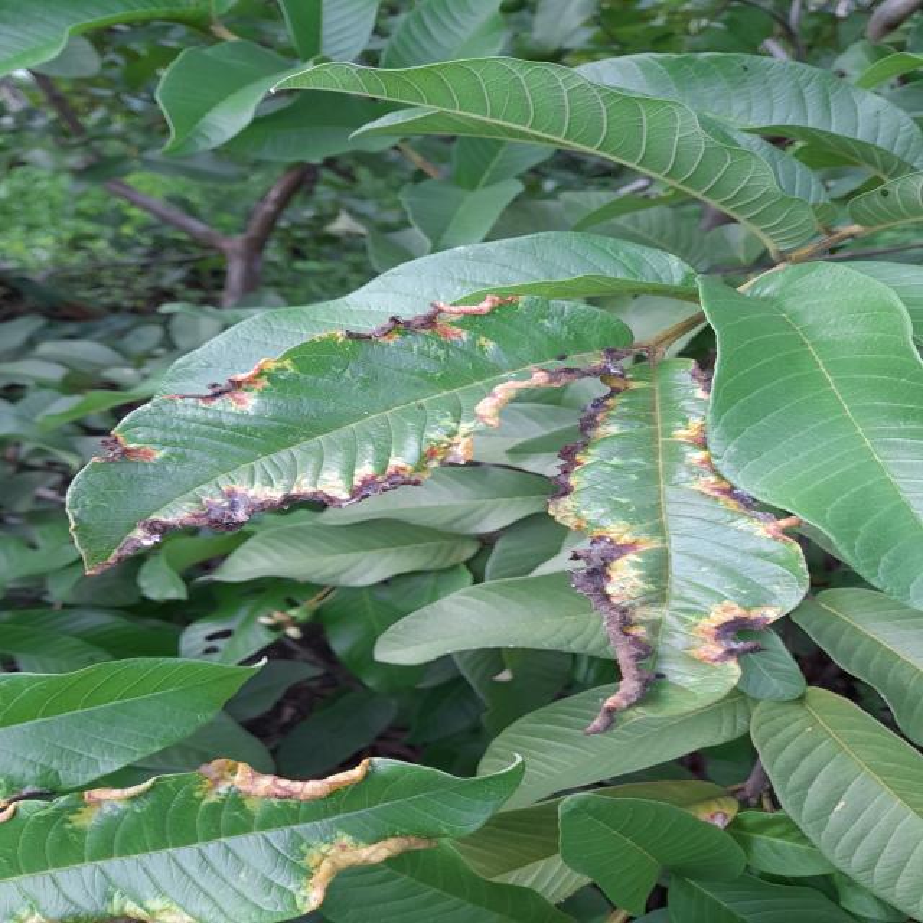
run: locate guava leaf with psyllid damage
[0,284,653,577]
